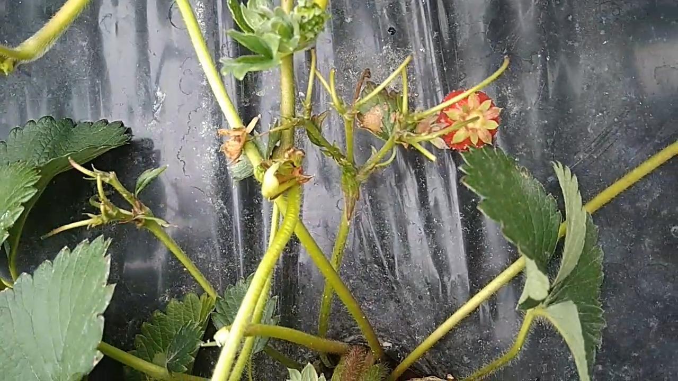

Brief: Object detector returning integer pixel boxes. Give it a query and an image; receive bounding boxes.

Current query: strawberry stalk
[402,123,474,147]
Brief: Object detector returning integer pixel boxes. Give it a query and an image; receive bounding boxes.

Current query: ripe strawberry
[439,88,504,154]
